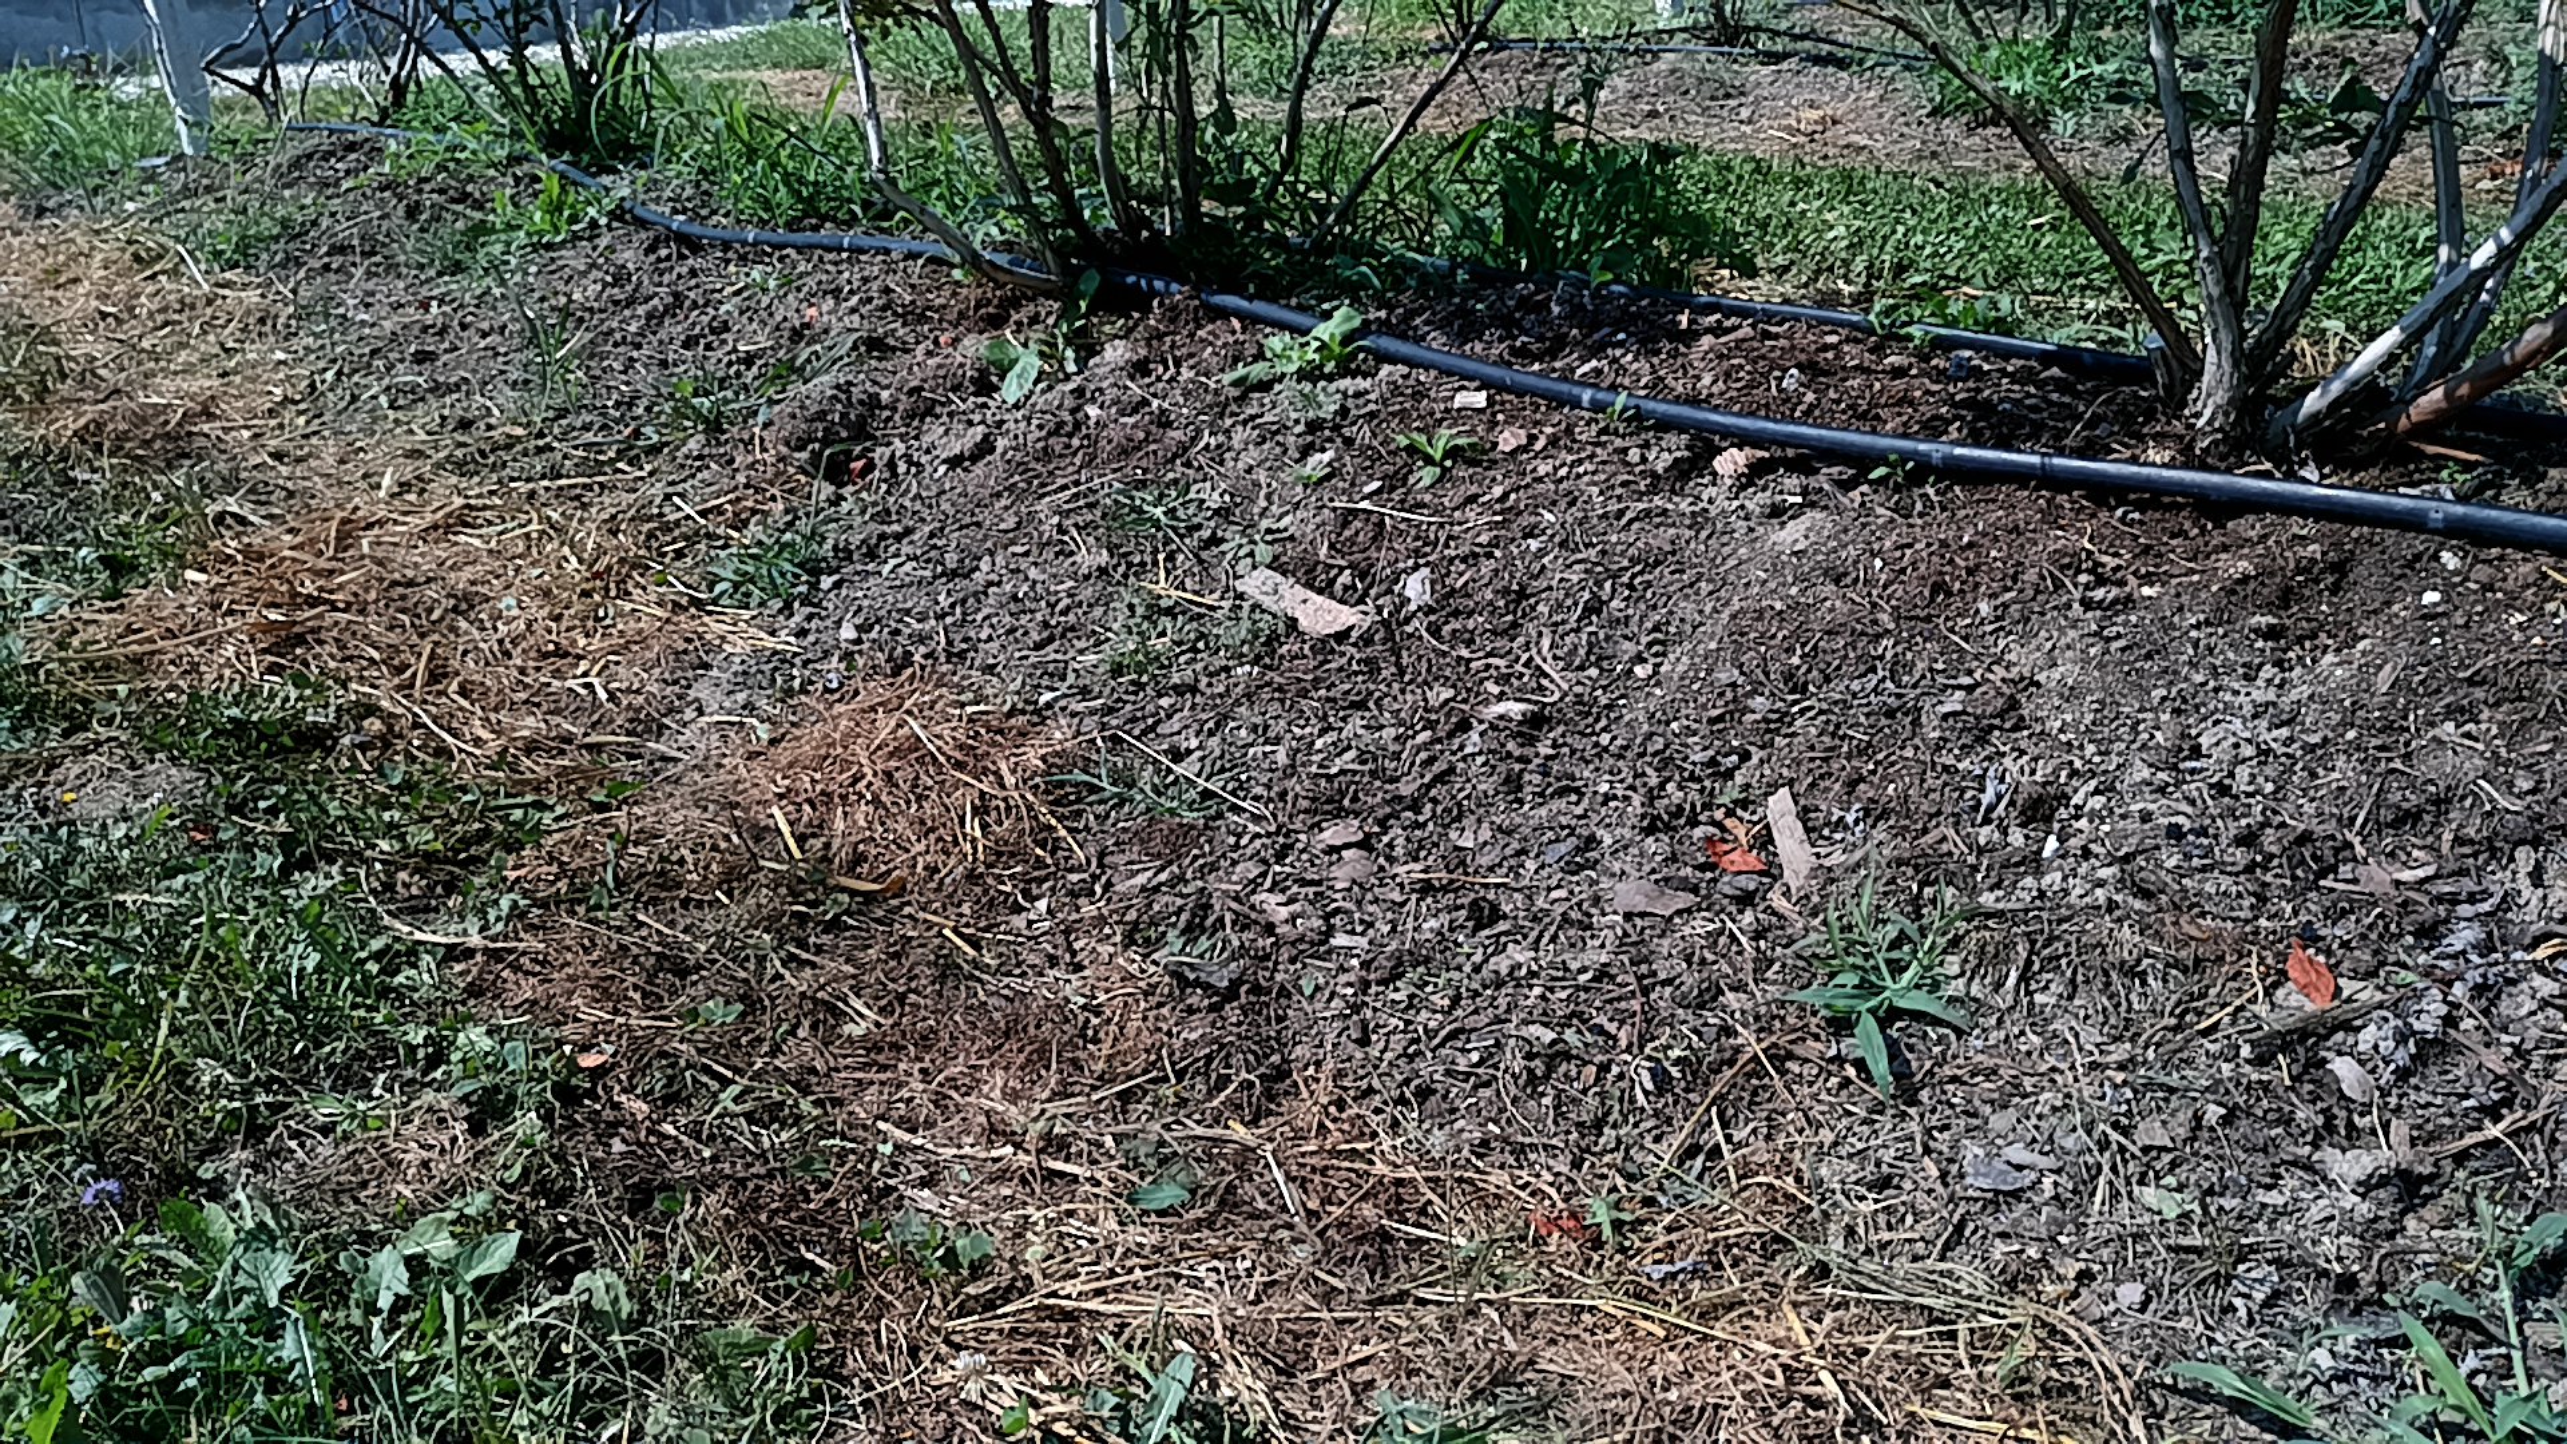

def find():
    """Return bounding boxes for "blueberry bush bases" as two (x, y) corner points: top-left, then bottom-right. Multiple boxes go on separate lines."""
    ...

(944, 103), (1432, 366)
(2067, 193), (2563, 559)
(199, 57), (419, 150)
(445, 47), (675, 205)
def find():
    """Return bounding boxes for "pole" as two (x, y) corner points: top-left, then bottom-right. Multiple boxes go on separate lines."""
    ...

(143, 23), (239, 168)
